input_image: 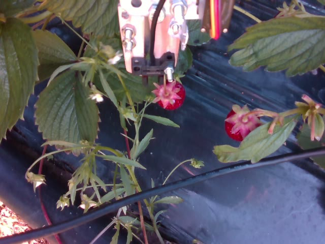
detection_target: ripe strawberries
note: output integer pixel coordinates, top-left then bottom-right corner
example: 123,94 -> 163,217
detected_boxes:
158,80 -> 187,109
226,110 -> 260,140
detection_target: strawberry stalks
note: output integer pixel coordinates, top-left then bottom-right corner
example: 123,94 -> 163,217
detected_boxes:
239,107 -> 268,124
162,72 -> 171,97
